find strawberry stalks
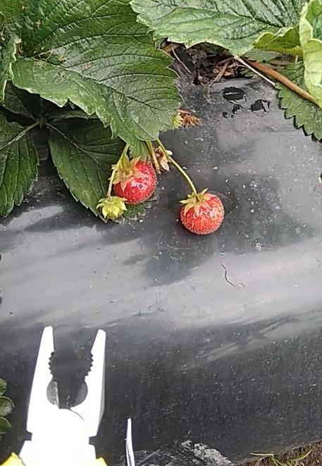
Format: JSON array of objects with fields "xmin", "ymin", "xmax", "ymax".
[
  {"xmin": 110, "ymin": 139, "xmax": 142, "ymax": 177},
  {"xmin": 163, "ymin": 143, "xmax": 206, "ymax": 206},
  {"xmin": 106, "ymin": 181, "xmax": 118, "ymax": 212}
]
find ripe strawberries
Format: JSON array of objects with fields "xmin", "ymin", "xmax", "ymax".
[
  {"xmin": 101, "ymin": 156, "xmax": 164, "ymax": 206},
  {"xmin": 173, "ymin": 189, "xmax": 240, "ymax": 241}
]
